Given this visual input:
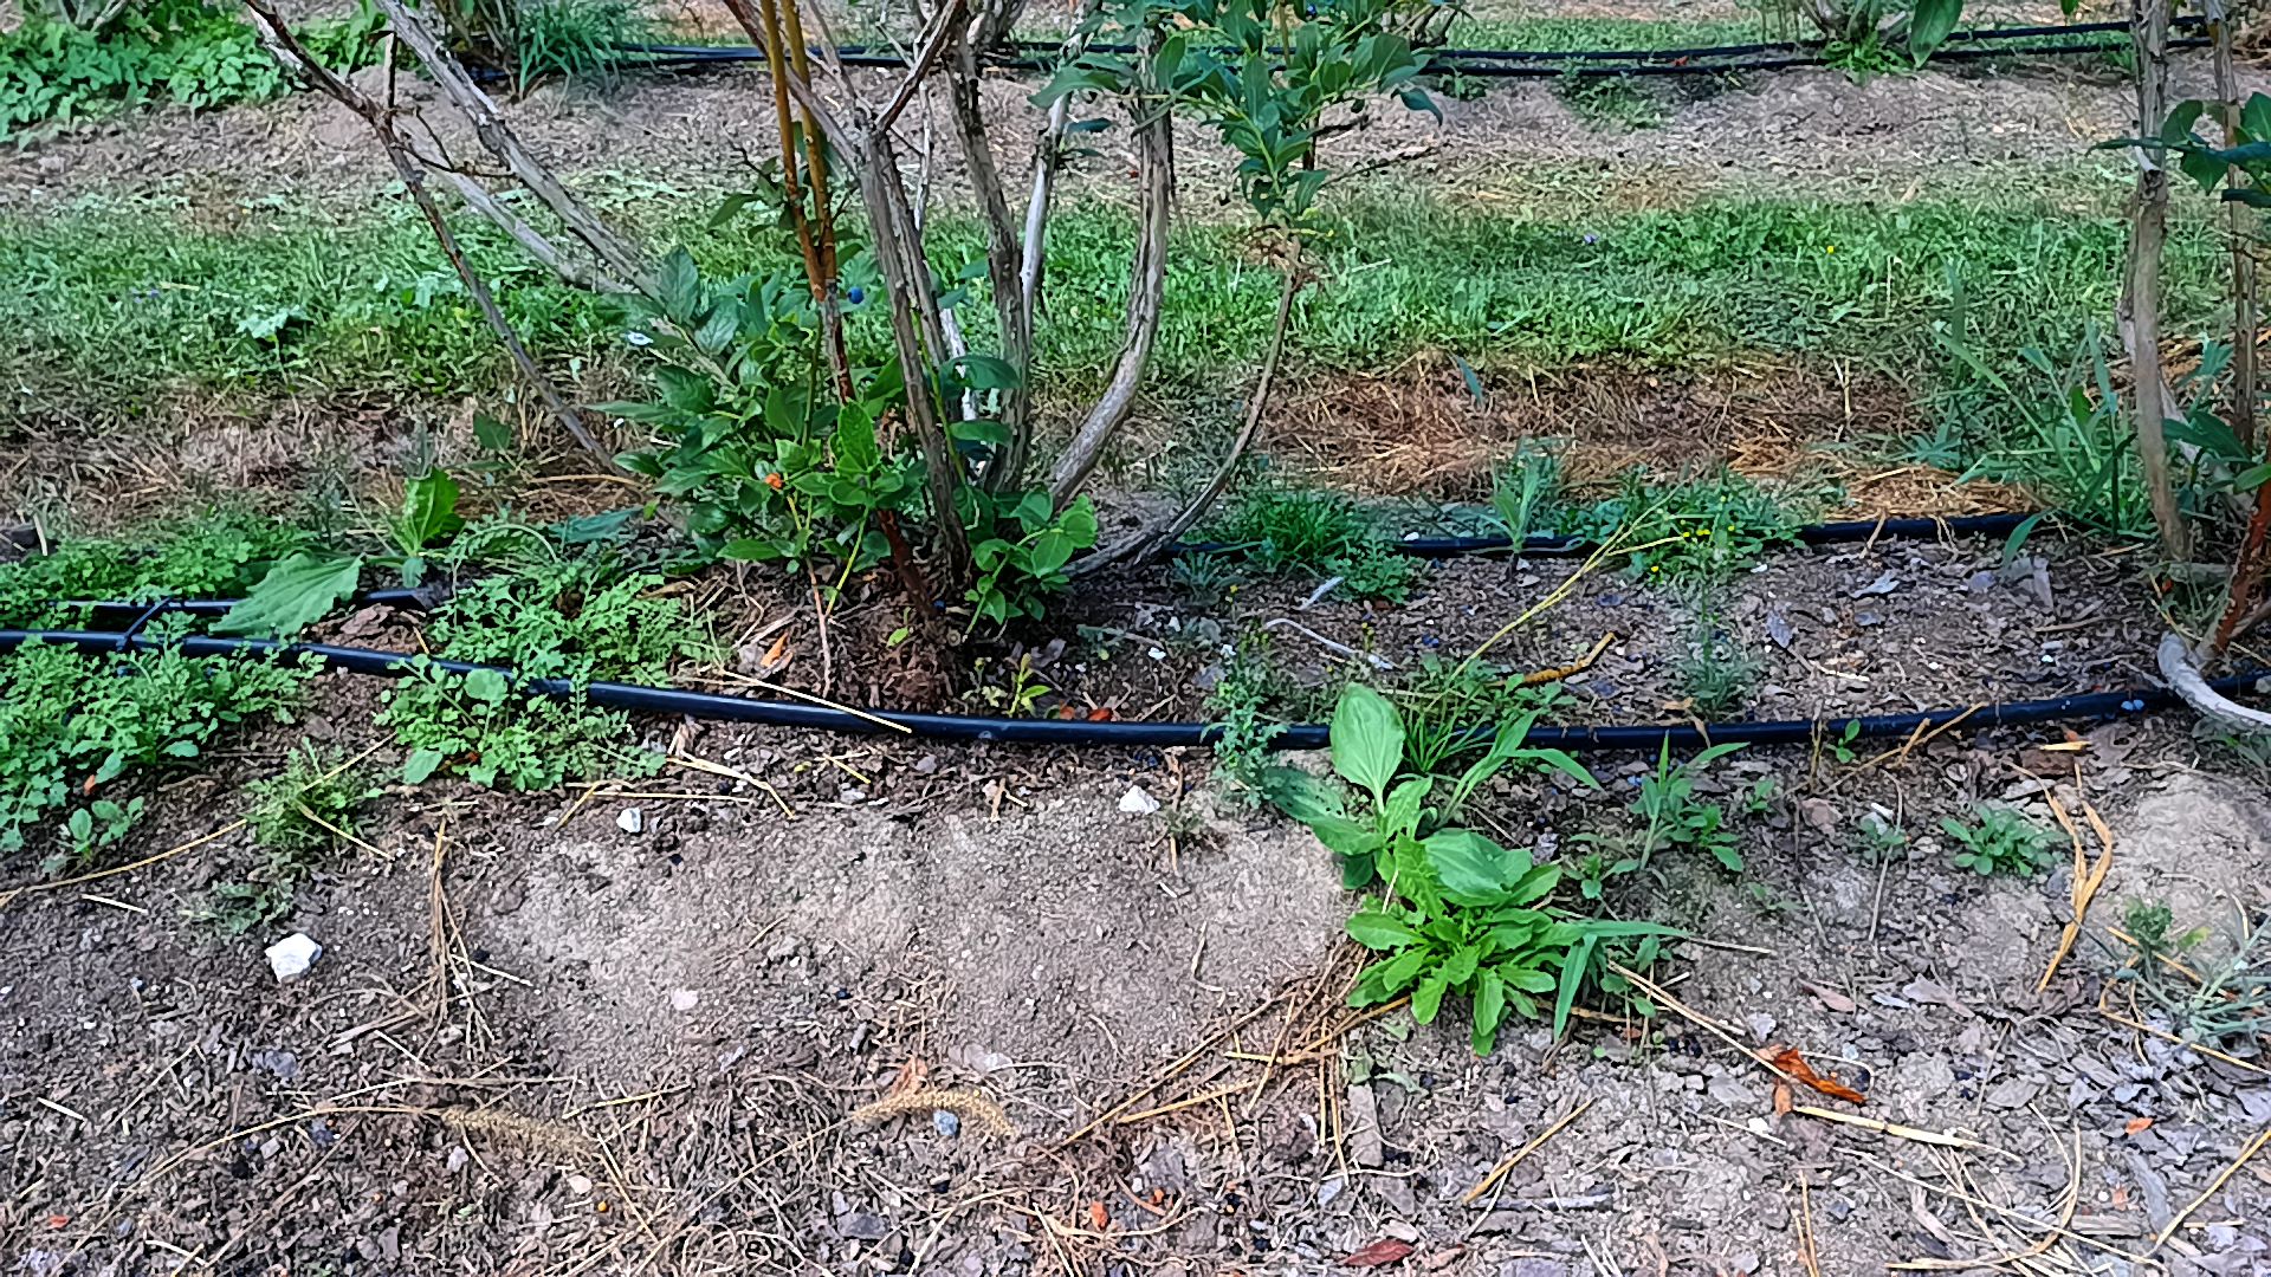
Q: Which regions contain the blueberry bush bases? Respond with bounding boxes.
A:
[695,319,1266,757]
[2096,345,2271,772]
